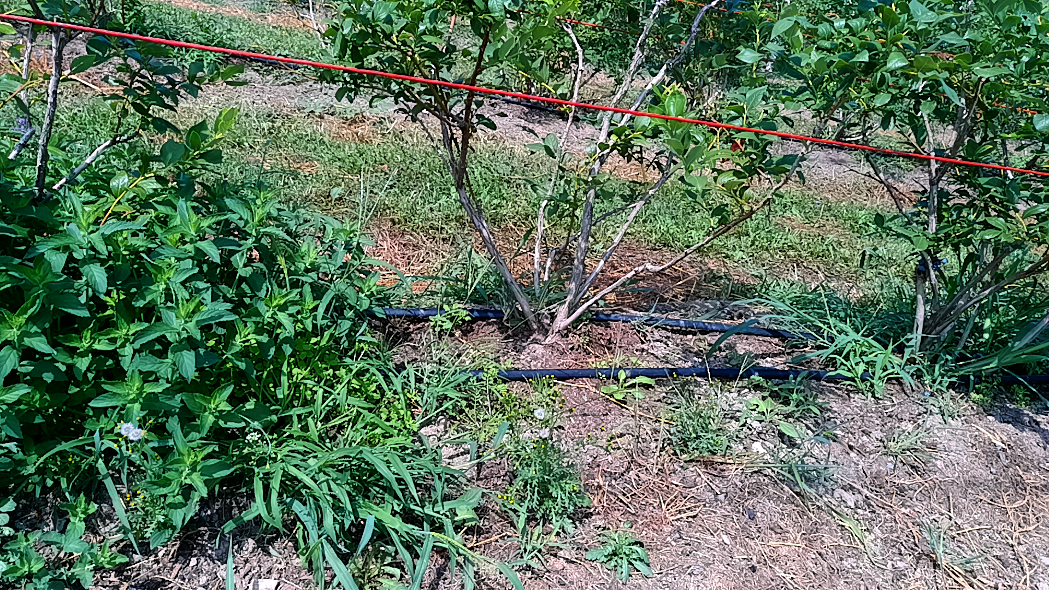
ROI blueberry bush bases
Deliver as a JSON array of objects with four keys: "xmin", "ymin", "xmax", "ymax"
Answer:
[
  {"xmin": 0, "ymin": 107, "xmax": 131, "ymax": 339},
  {"xmin": 439, "ymin": 182, "xmax": 687, "ymax": 375},
  {"xmin": 874, "ymin": 237, "xmax": 1040, "ymax": 400}
]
